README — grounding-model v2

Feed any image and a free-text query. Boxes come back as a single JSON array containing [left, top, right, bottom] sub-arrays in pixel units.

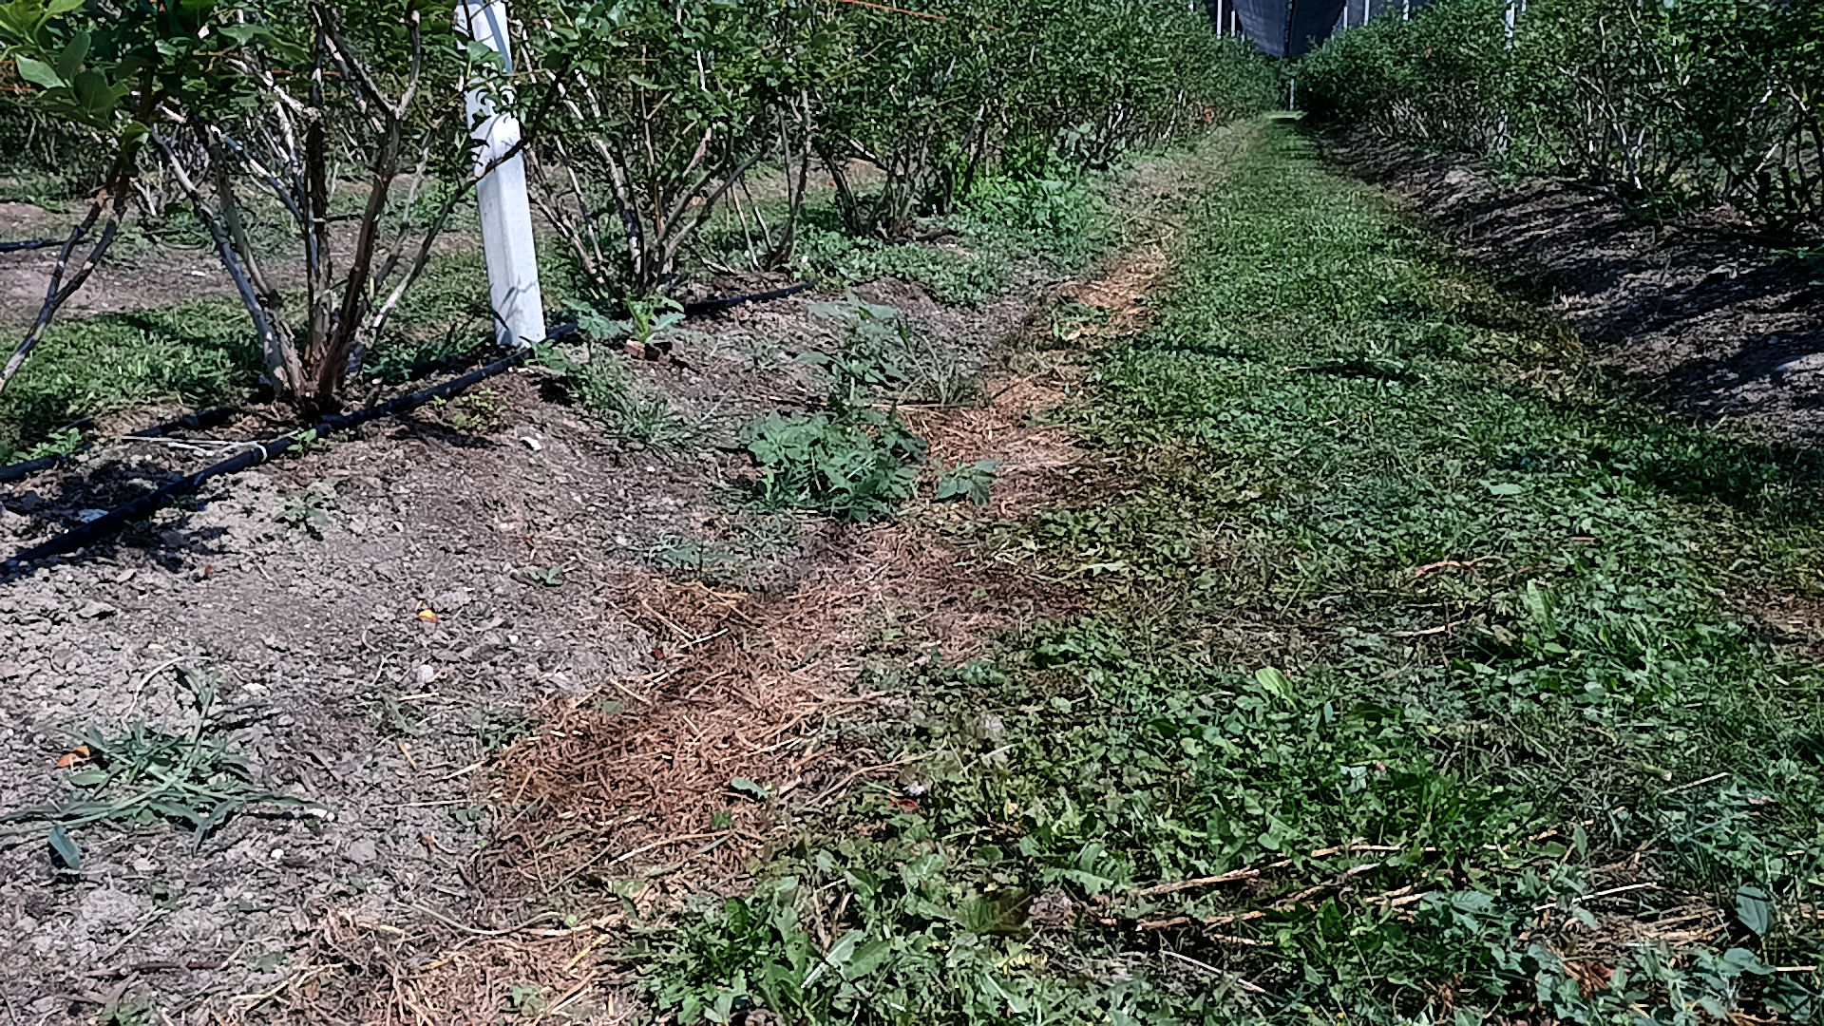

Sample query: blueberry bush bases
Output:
[[109, 175, 205, 236], [1579, 140, 1690, 226], [203, 270, 441, 454], [1729, 143, 1821, 273], [702, 209, 820, 299], [822, 181, 938, 256], [560, 210, 716, 337]]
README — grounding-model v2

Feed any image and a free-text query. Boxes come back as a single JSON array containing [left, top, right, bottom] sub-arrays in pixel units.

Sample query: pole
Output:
[[458, 0, 547, 378]]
